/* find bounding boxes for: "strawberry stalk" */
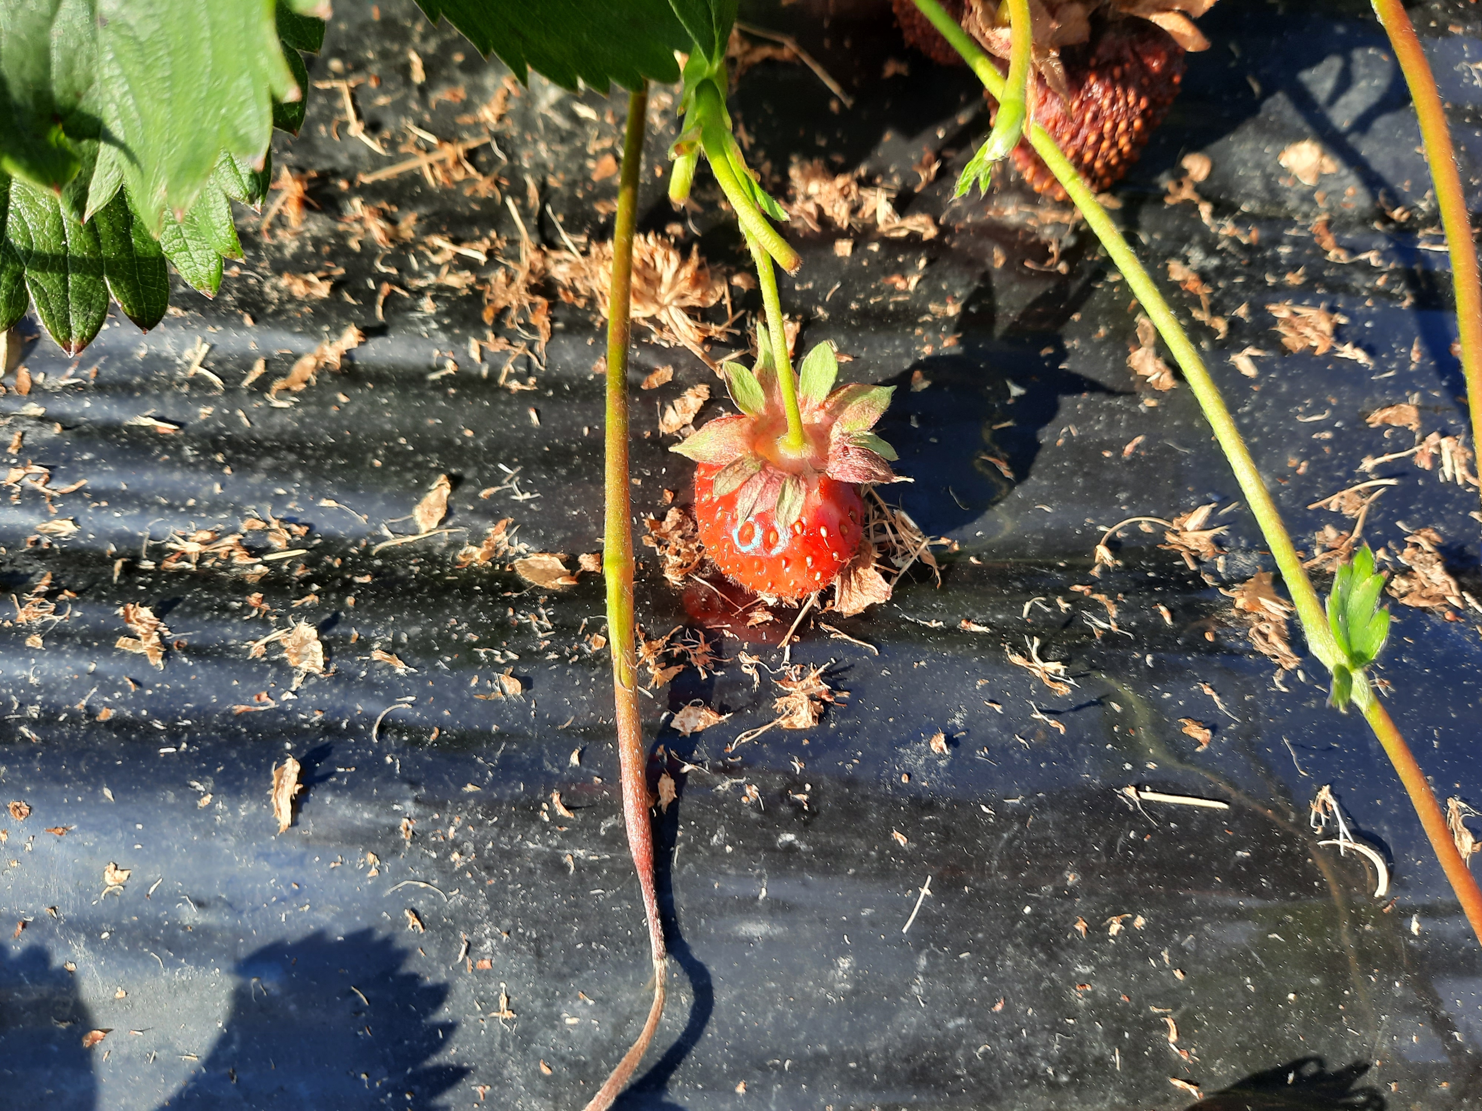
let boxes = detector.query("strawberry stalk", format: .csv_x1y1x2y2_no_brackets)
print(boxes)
740,201,820,478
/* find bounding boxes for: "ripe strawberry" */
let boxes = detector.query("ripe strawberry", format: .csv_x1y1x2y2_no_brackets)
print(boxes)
690,422,895,590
